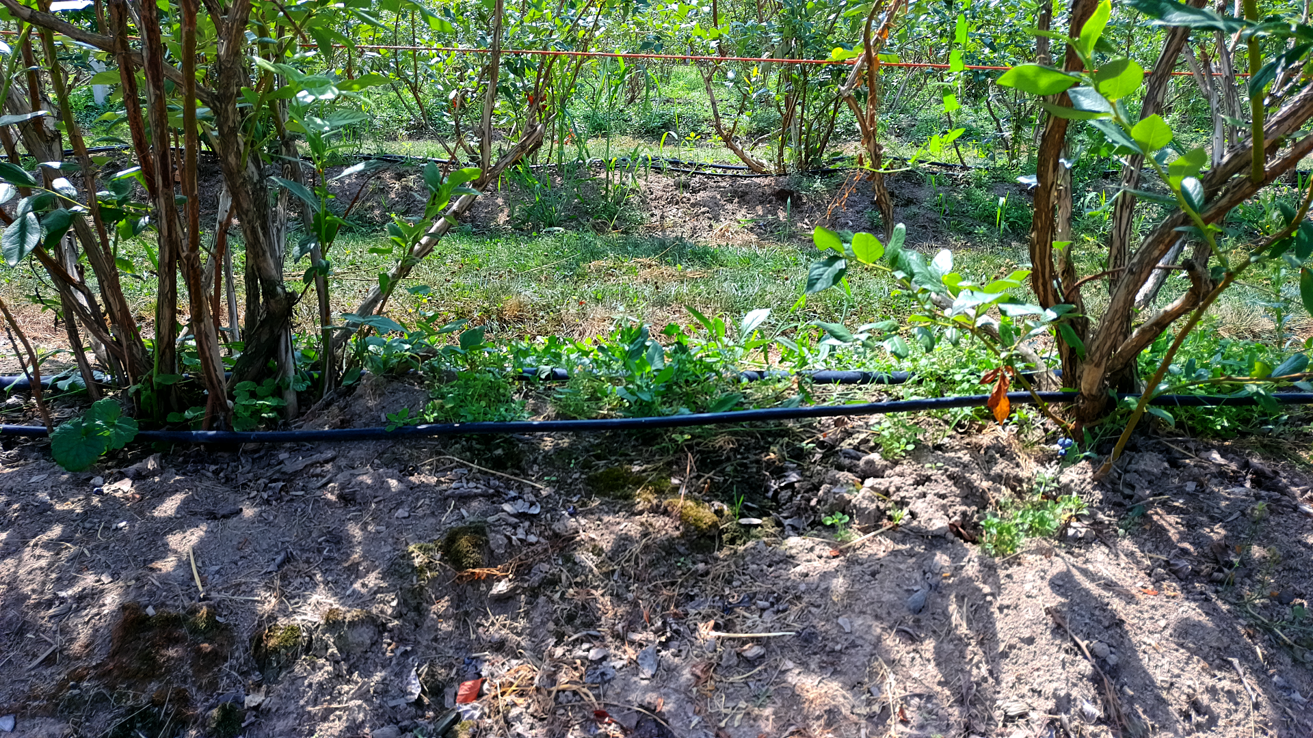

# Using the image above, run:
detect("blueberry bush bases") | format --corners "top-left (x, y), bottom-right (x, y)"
top-left (715, 112), bottom-right (858, 211)
top-left (432, 119), bottom-right (570, 221)
top-left (974, 269), bottom-right (1239, 500)
top-left (0, 204), bottom-right (429, 521)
